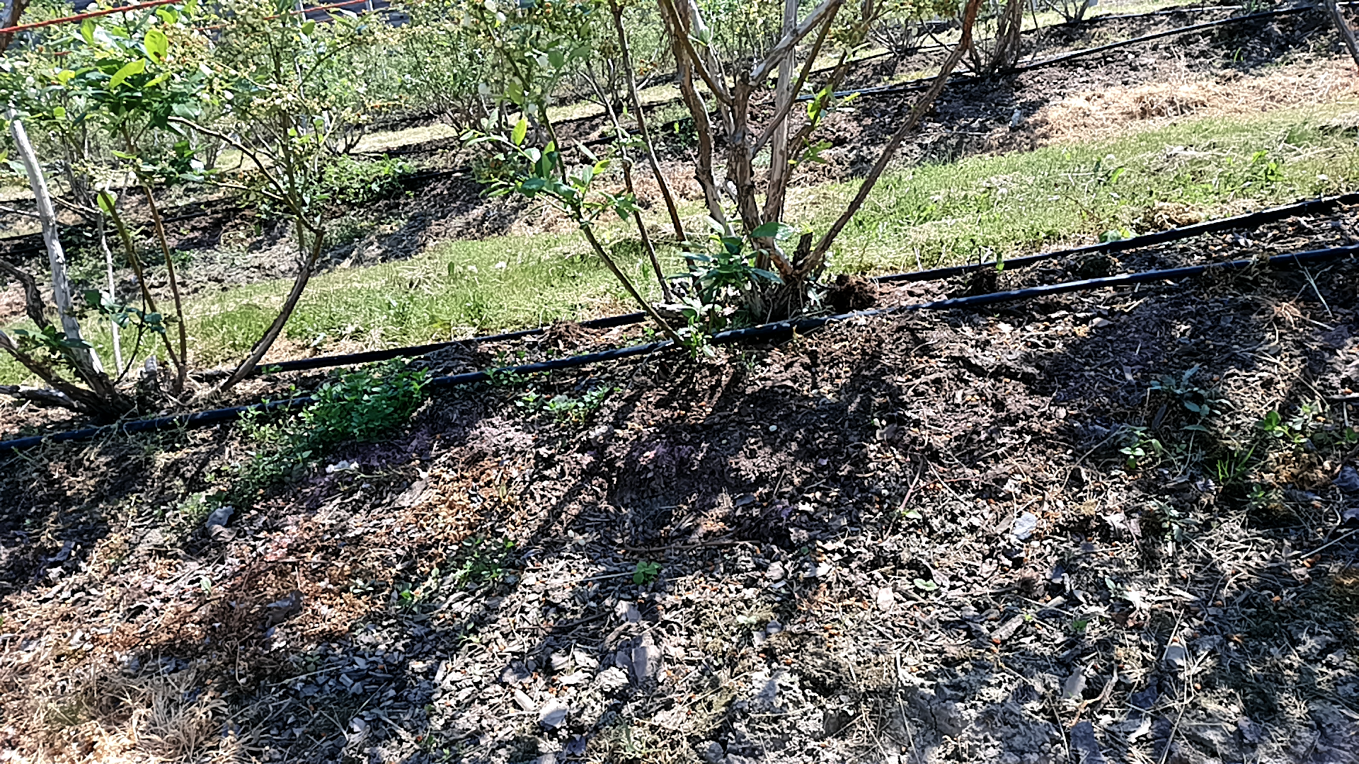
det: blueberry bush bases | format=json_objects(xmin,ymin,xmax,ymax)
[
  {"xmin": 602, "ymin": 187, "xmax": 881, "ymax": 386},
  {"xmin": 595, "ymin": 82, "xmax": 651, "ymax": 130},
  {"xmin": 0, "ymin": 273, "xmax": 294, "ymax": 454},
  {"xmin": 946, "ymin": 26, "xmax": 1039, "ymax": 93},
  {"xmin": 1053, "ymin": 0, "xmax": 1098, "ymax": 37},
  {"xmin": 249, "ymin": 154, "xmax": 345, "ymax": 217}
]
